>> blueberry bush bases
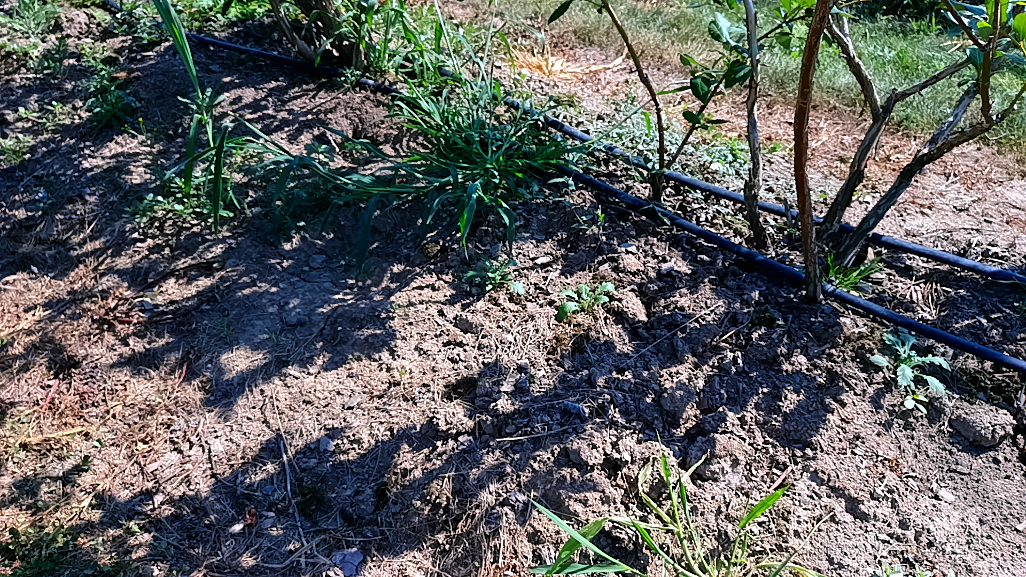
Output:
[245,0,385,89]
[680,153,922,351]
